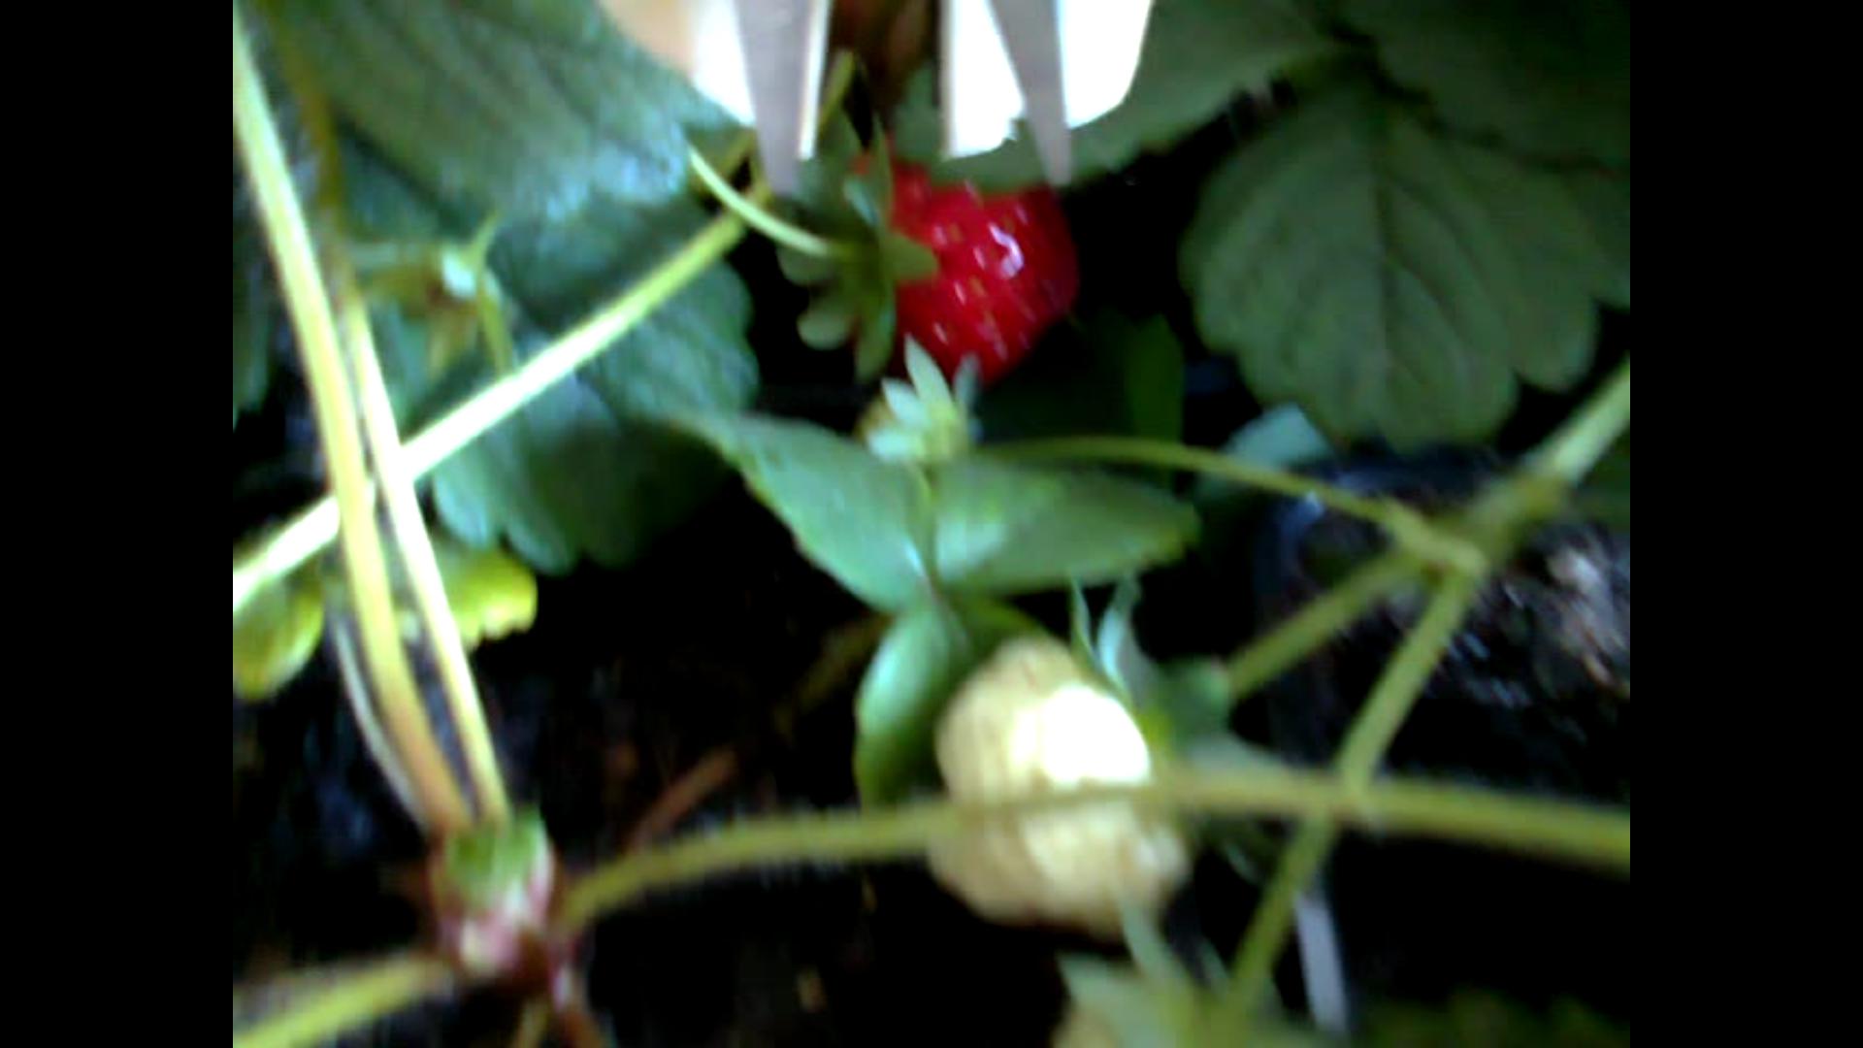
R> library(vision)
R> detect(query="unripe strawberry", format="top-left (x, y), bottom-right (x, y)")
top-left (918, 647), bottom-right (1173, 923)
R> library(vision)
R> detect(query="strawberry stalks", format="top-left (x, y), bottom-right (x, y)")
top-left (676, 151), bottom-right (963, 297)
top-left (1152, 577), bottom-right (1390, 715)
top-left (934, 397), bottom-right (1192, 500)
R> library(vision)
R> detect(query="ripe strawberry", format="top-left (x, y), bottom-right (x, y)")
top-left (860, 135), bottom-right (1104, 377)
